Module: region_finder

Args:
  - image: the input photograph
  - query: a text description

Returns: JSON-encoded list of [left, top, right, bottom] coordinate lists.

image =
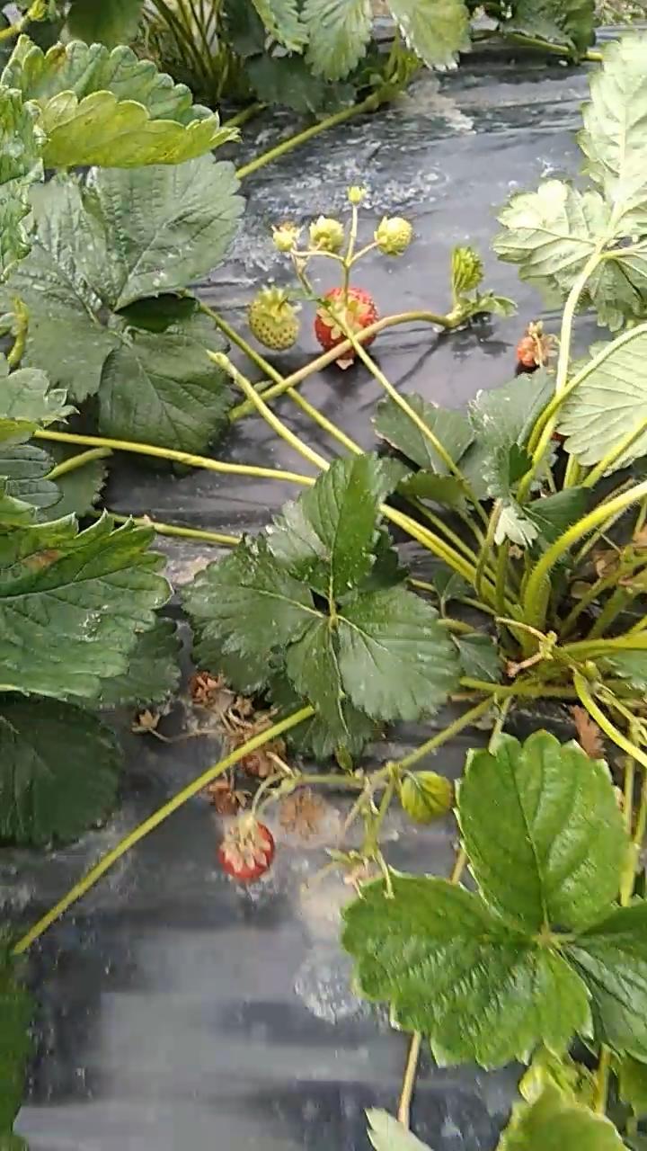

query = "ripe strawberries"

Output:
[[314, 289, 379, 357], [219, 823, 278, 880]]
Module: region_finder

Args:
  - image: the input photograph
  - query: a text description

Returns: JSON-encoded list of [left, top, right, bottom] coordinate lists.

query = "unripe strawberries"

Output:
[[248, 297, 302, 352], [377, 215, 419, 255], [511, 324, 554, 373], [310, 217, 346, 251]]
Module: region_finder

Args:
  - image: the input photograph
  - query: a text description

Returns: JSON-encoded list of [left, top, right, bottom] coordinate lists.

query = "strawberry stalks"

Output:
[[263, 285, 317, 322], [282, 233, 319, 261], [343, 193, 367, 230], [332, 303, 375, 371], [368, 228, 393, 254], [244, 766, 280, 849]]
